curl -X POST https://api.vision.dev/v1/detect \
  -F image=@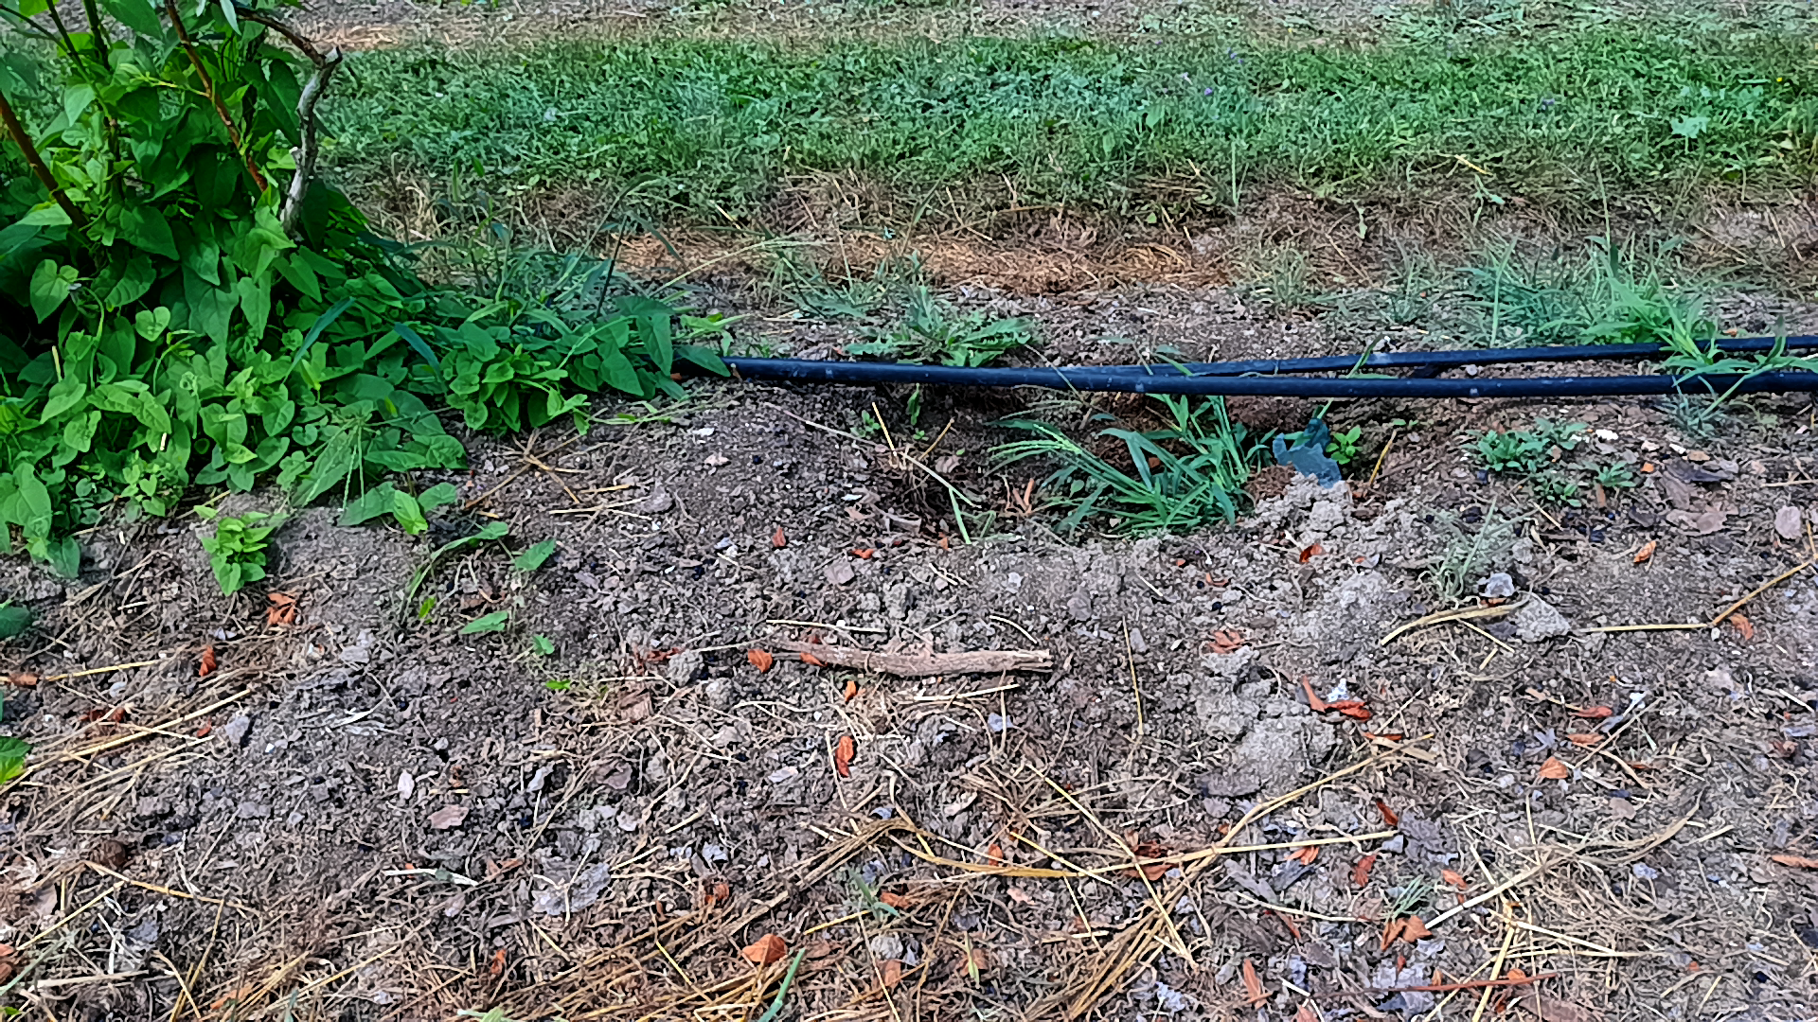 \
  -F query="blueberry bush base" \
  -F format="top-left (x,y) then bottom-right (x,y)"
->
top-left (4, 30), bottom-right (365, 430)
